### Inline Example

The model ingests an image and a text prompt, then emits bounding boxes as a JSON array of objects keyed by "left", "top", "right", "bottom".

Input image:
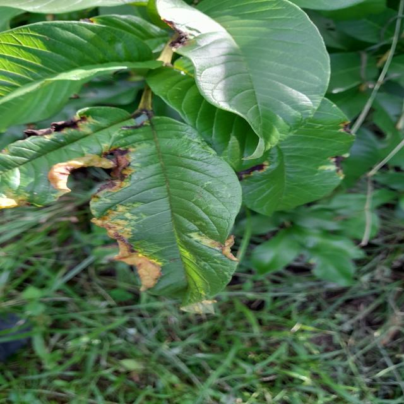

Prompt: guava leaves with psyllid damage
[
  {"left": 0, "top": 104, "right": 159, "bottom": 213},
  {"left": 85, "top": 110, "right": 257, "bottom": 340}
]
